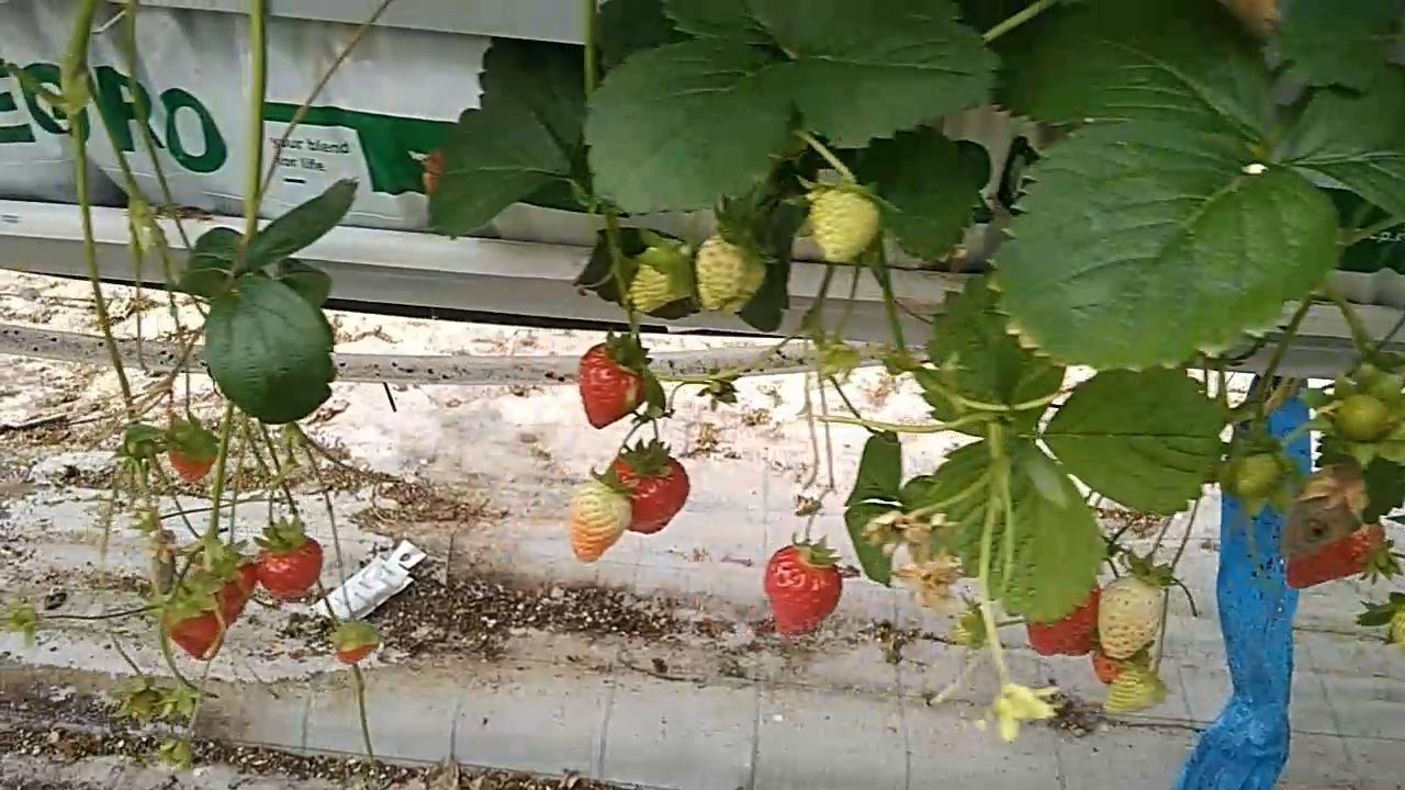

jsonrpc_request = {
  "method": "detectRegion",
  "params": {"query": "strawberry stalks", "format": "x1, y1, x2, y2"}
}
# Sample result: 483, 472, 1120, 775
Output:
791, 483, 841, 572
263, 489, 303, 557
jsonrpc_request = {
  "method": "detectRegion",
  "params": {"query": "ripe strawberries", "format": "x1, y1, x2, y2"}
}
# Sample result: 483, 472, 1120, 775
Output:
600, 444, 685, 537
168, 433, 216, 482
1031, 590, 1100, 661
256, 541, 323, 600
1290, 520, 1375, 586
168, 607, 217, 660
204, 560, 254, 625
761, 542, 843, 641
580, 340, 657, 427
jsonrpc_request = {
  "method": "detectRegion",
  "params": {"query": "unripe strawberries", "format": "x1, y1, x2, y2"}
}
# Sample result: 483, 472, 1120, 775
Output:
699, 225, 769, 314
807, 190, 880, 266
566, 482, 625, 567
628, 244, 685, 320
1102, 579, 1165, 658
1102, 674, 1169, 716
